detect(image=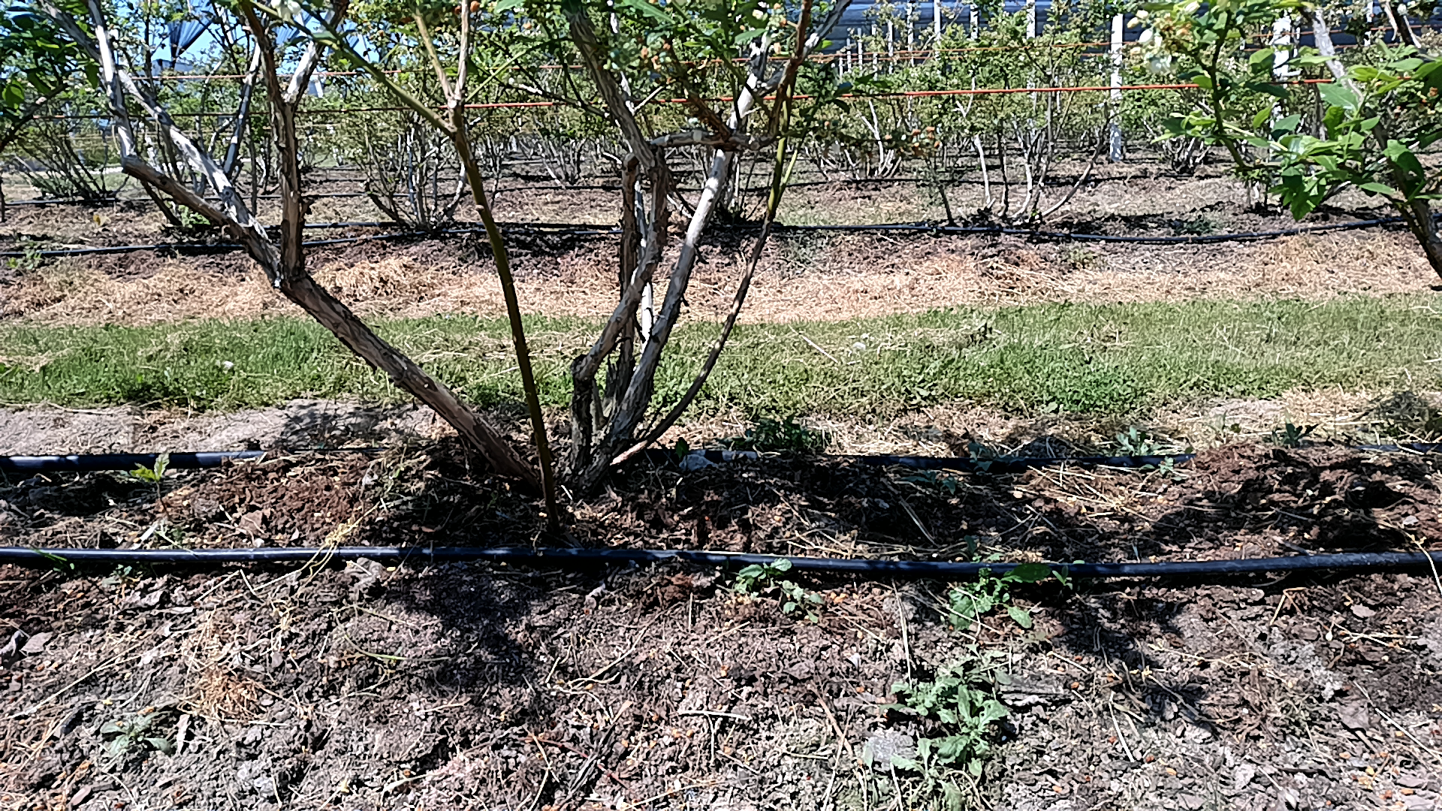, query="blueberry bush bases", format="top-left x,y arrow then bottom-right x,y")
822,143 -> 909,202
363,153 -> 490,250
645,161 -> 794,260
967,163 -> 1083,240
525,142 -> 606,207
146,173 -> 266,276
336,293 -> 743,552
52,161 -> 141,216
